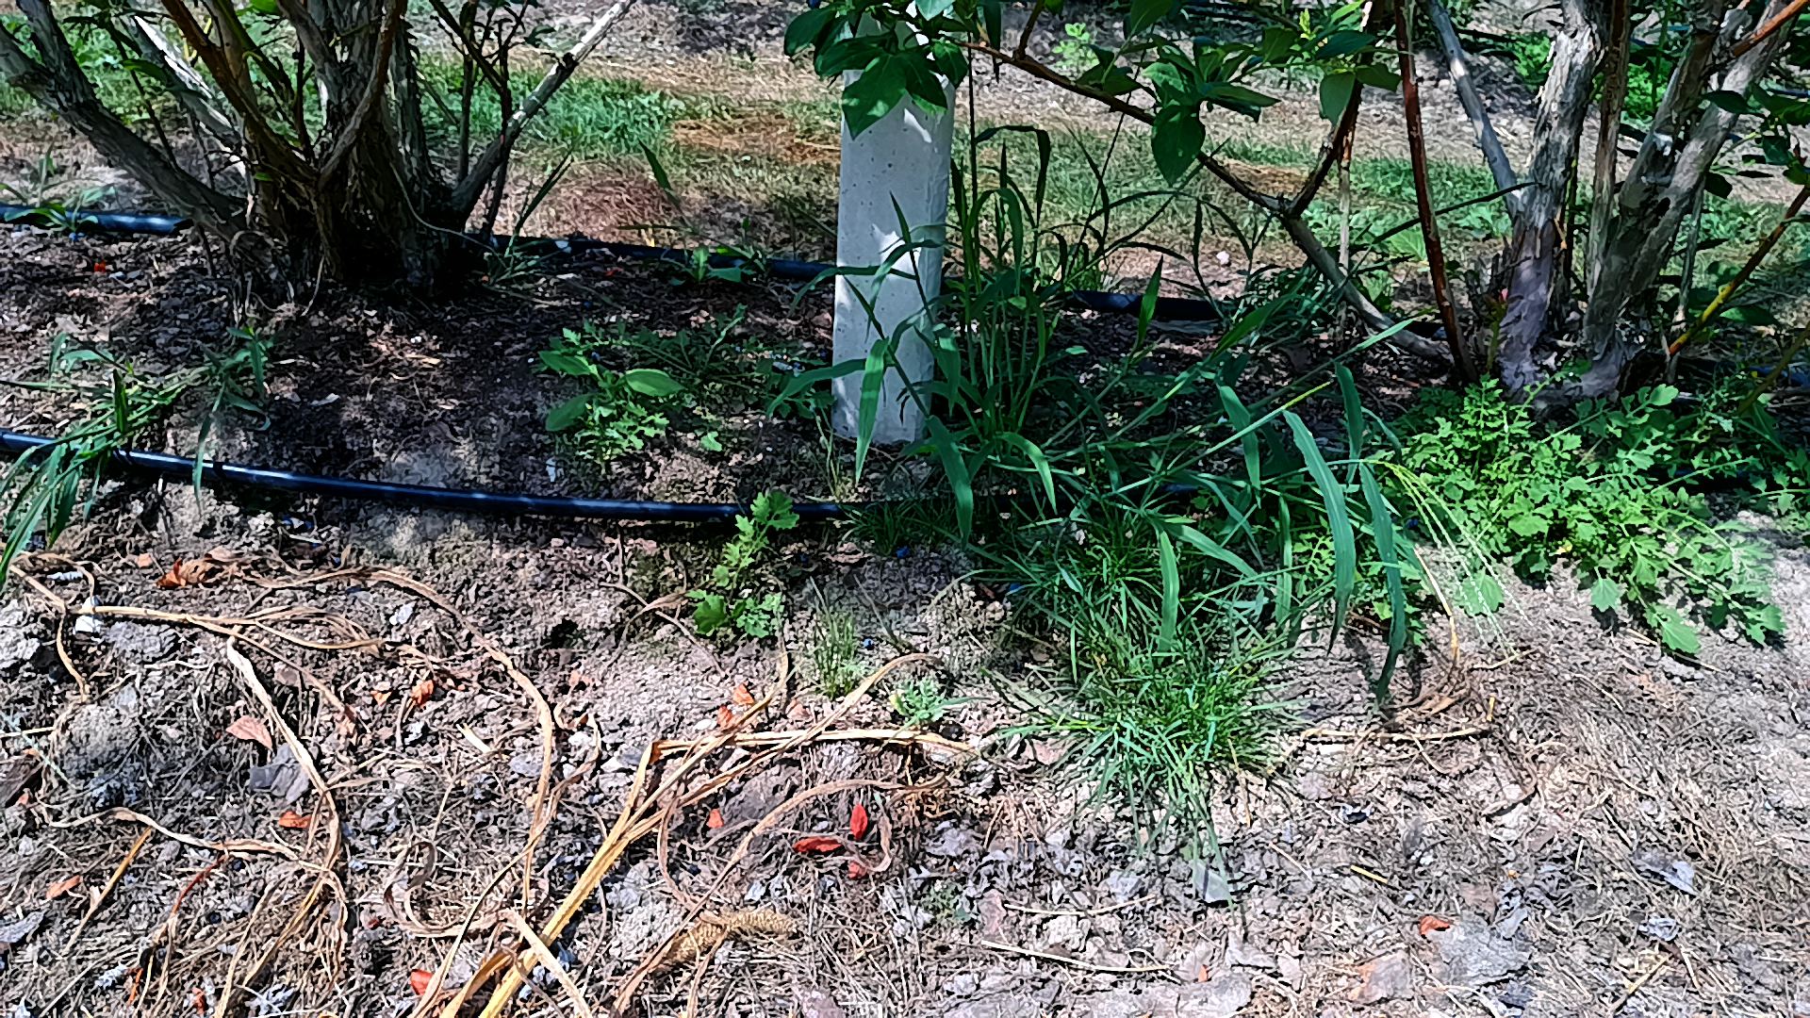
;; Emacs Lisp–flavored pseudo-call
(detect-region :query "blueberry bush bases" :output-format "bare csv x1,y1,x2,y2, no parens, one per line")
1383,161,1785,517
114,55,569,373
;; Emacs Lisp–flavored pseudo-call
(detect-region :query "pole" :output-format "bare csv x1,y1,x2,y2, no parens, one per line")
809,94,963,479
